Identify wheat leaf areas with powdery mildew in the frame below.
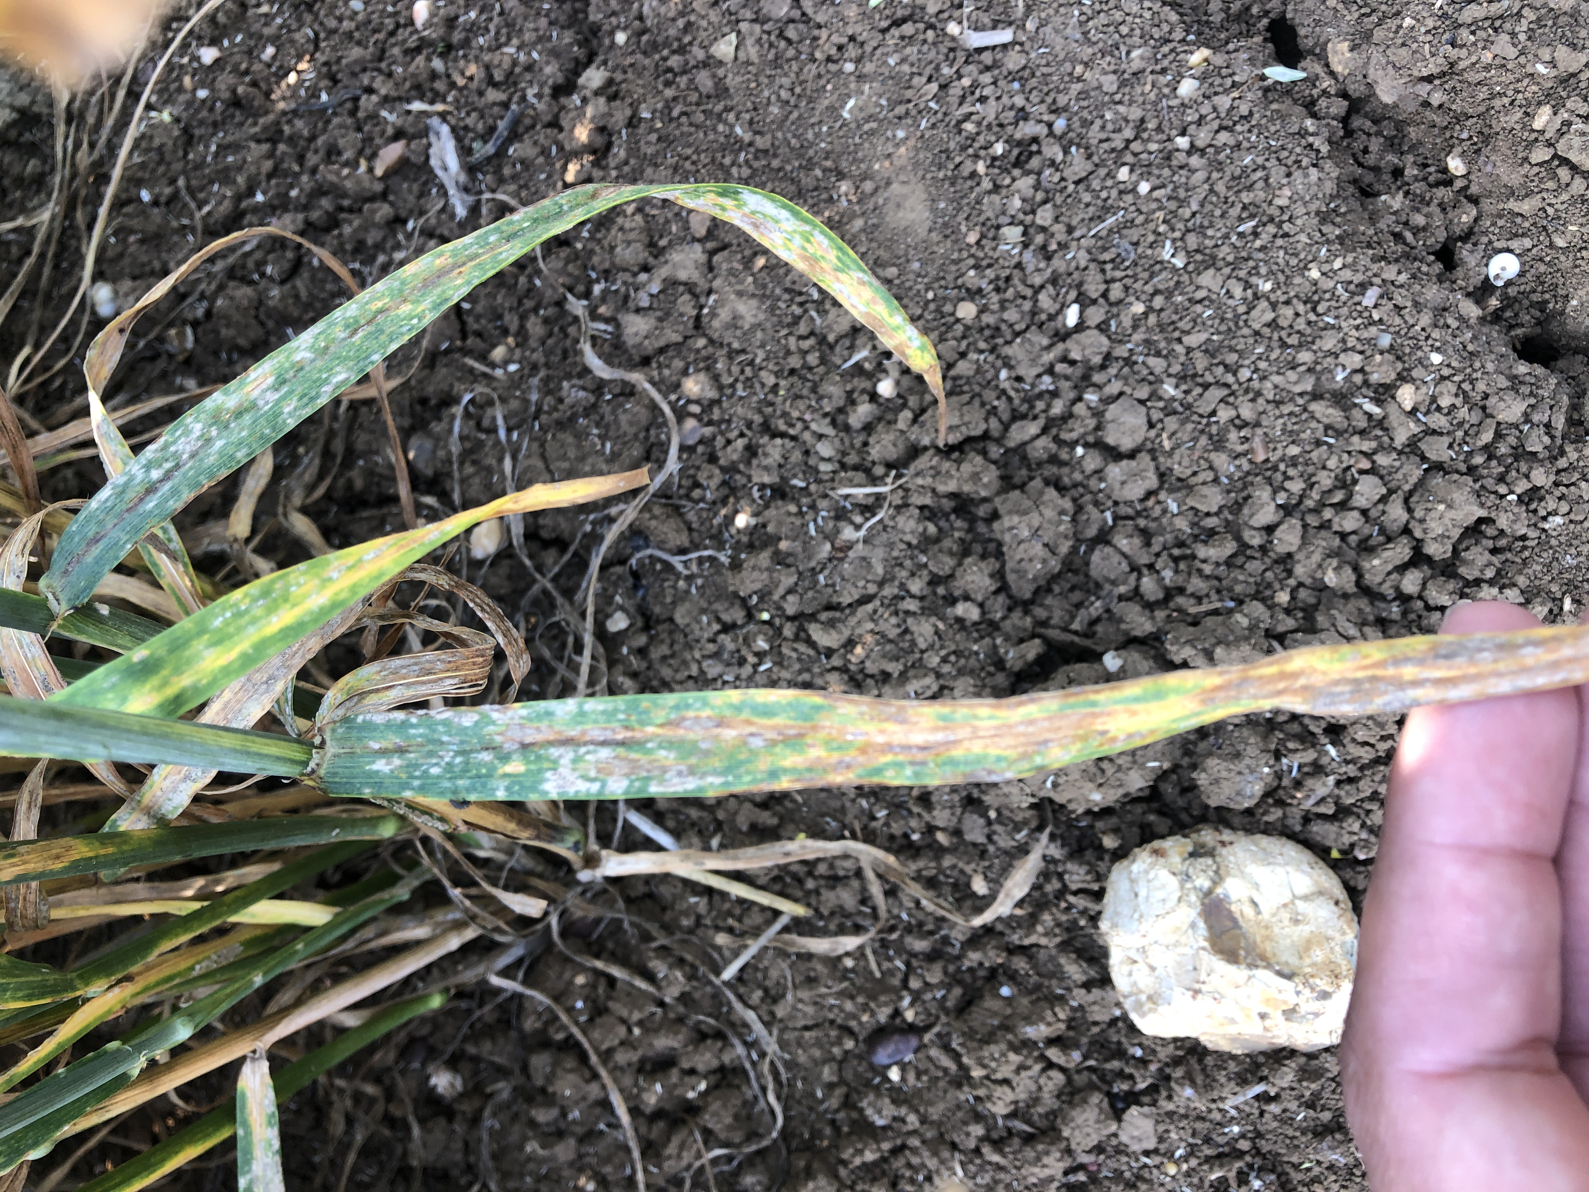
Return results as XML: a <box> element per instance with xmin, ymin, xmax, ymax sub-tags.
<box><xmin>112</xmin><ymin>640</ymin><xmax>318</xmax><ymax>846</ymax></box>
<box><xmin>171</xmin><ymin>583</ymin><xmax>281</xmax><ymax>664</ymax></box>
<box><xmin>216</xmin><ymin>1034</ymin><xmax>305</xmax><ymax>1192</ymax></box>
<box><xmin>64</xmin><ymin>134</ymin><xmax>846</xmax><ymax>550</ymax></box>
<box><xmin>336</xmin><ymin>612</ymin><xmax>1117</xmax><ymax>837</ymax></box>
<box><xmin>1271</xmin><ymin>531</ymin><xmax>1589</xmax><ymax>734</ymax></box>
